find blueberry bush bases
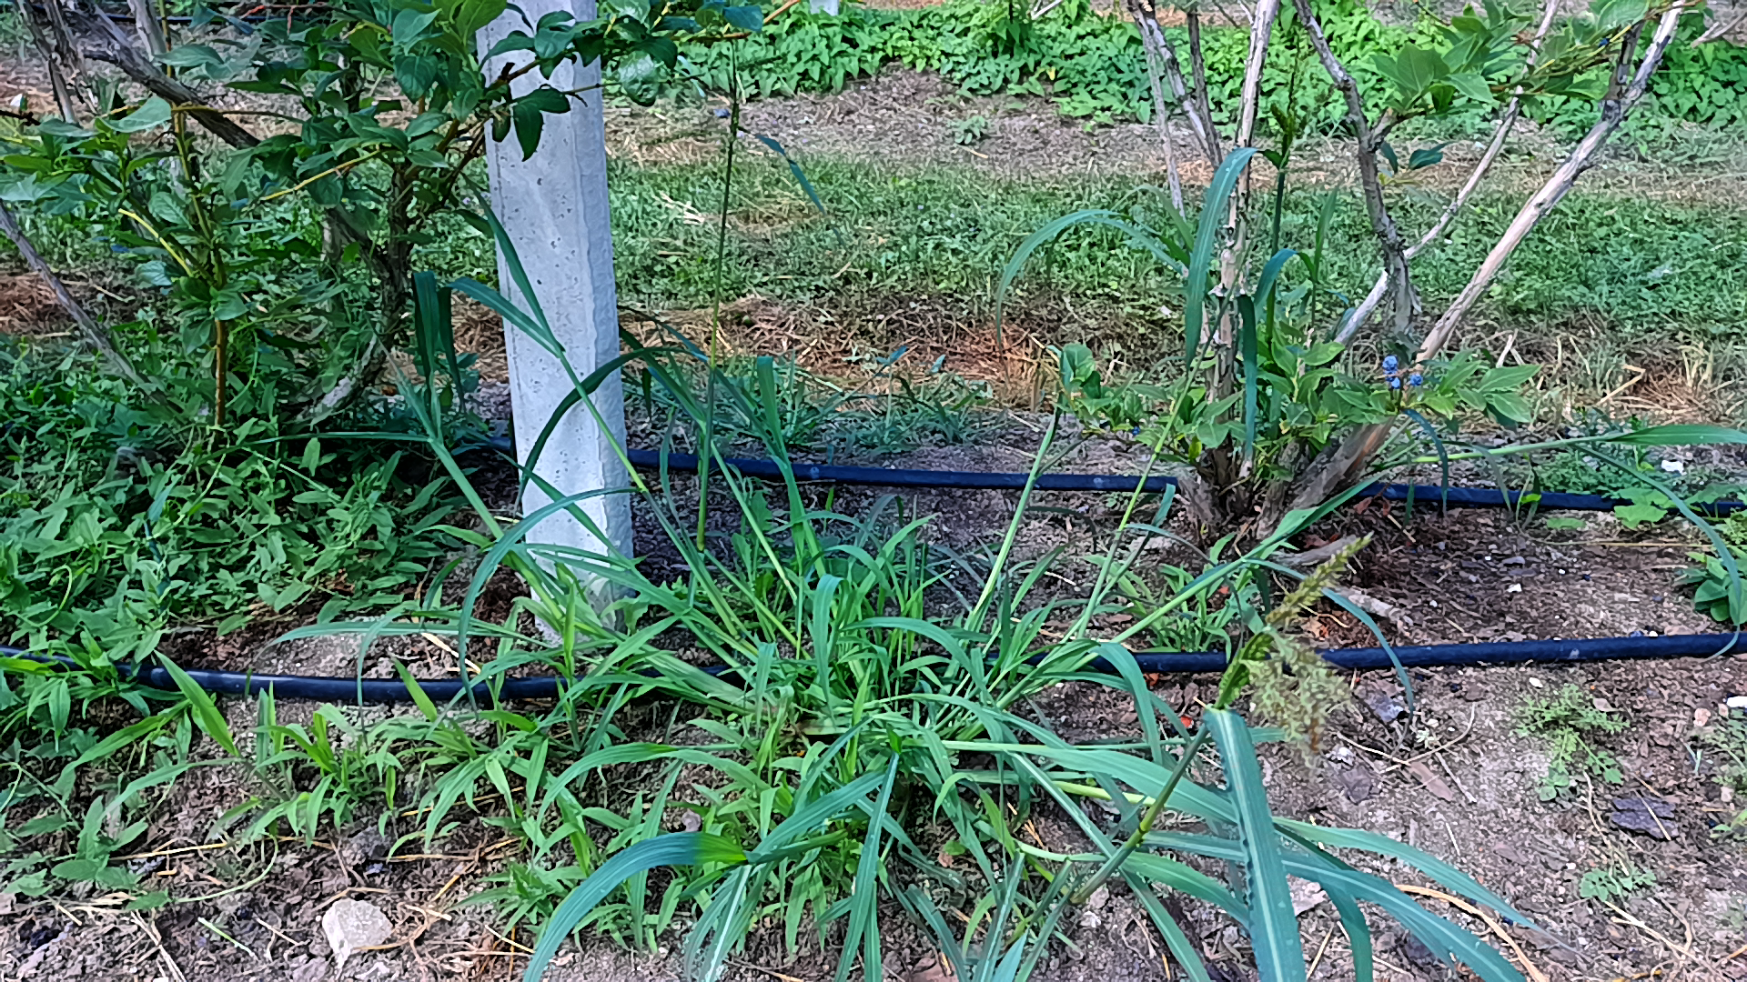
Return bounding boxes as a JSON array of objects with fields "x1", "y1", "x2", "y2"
[
  {"x1": 1096, "y1": 325, "x2": 1461, "y2": 678},
  {"x1": 15, "y1": 155, "x2": 449, "y2": 595}
]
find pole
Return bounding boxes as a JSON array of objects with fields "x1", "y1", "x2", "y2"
[{"x1": 466, "y1": 40, "x2": 677, "y2": 633}]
